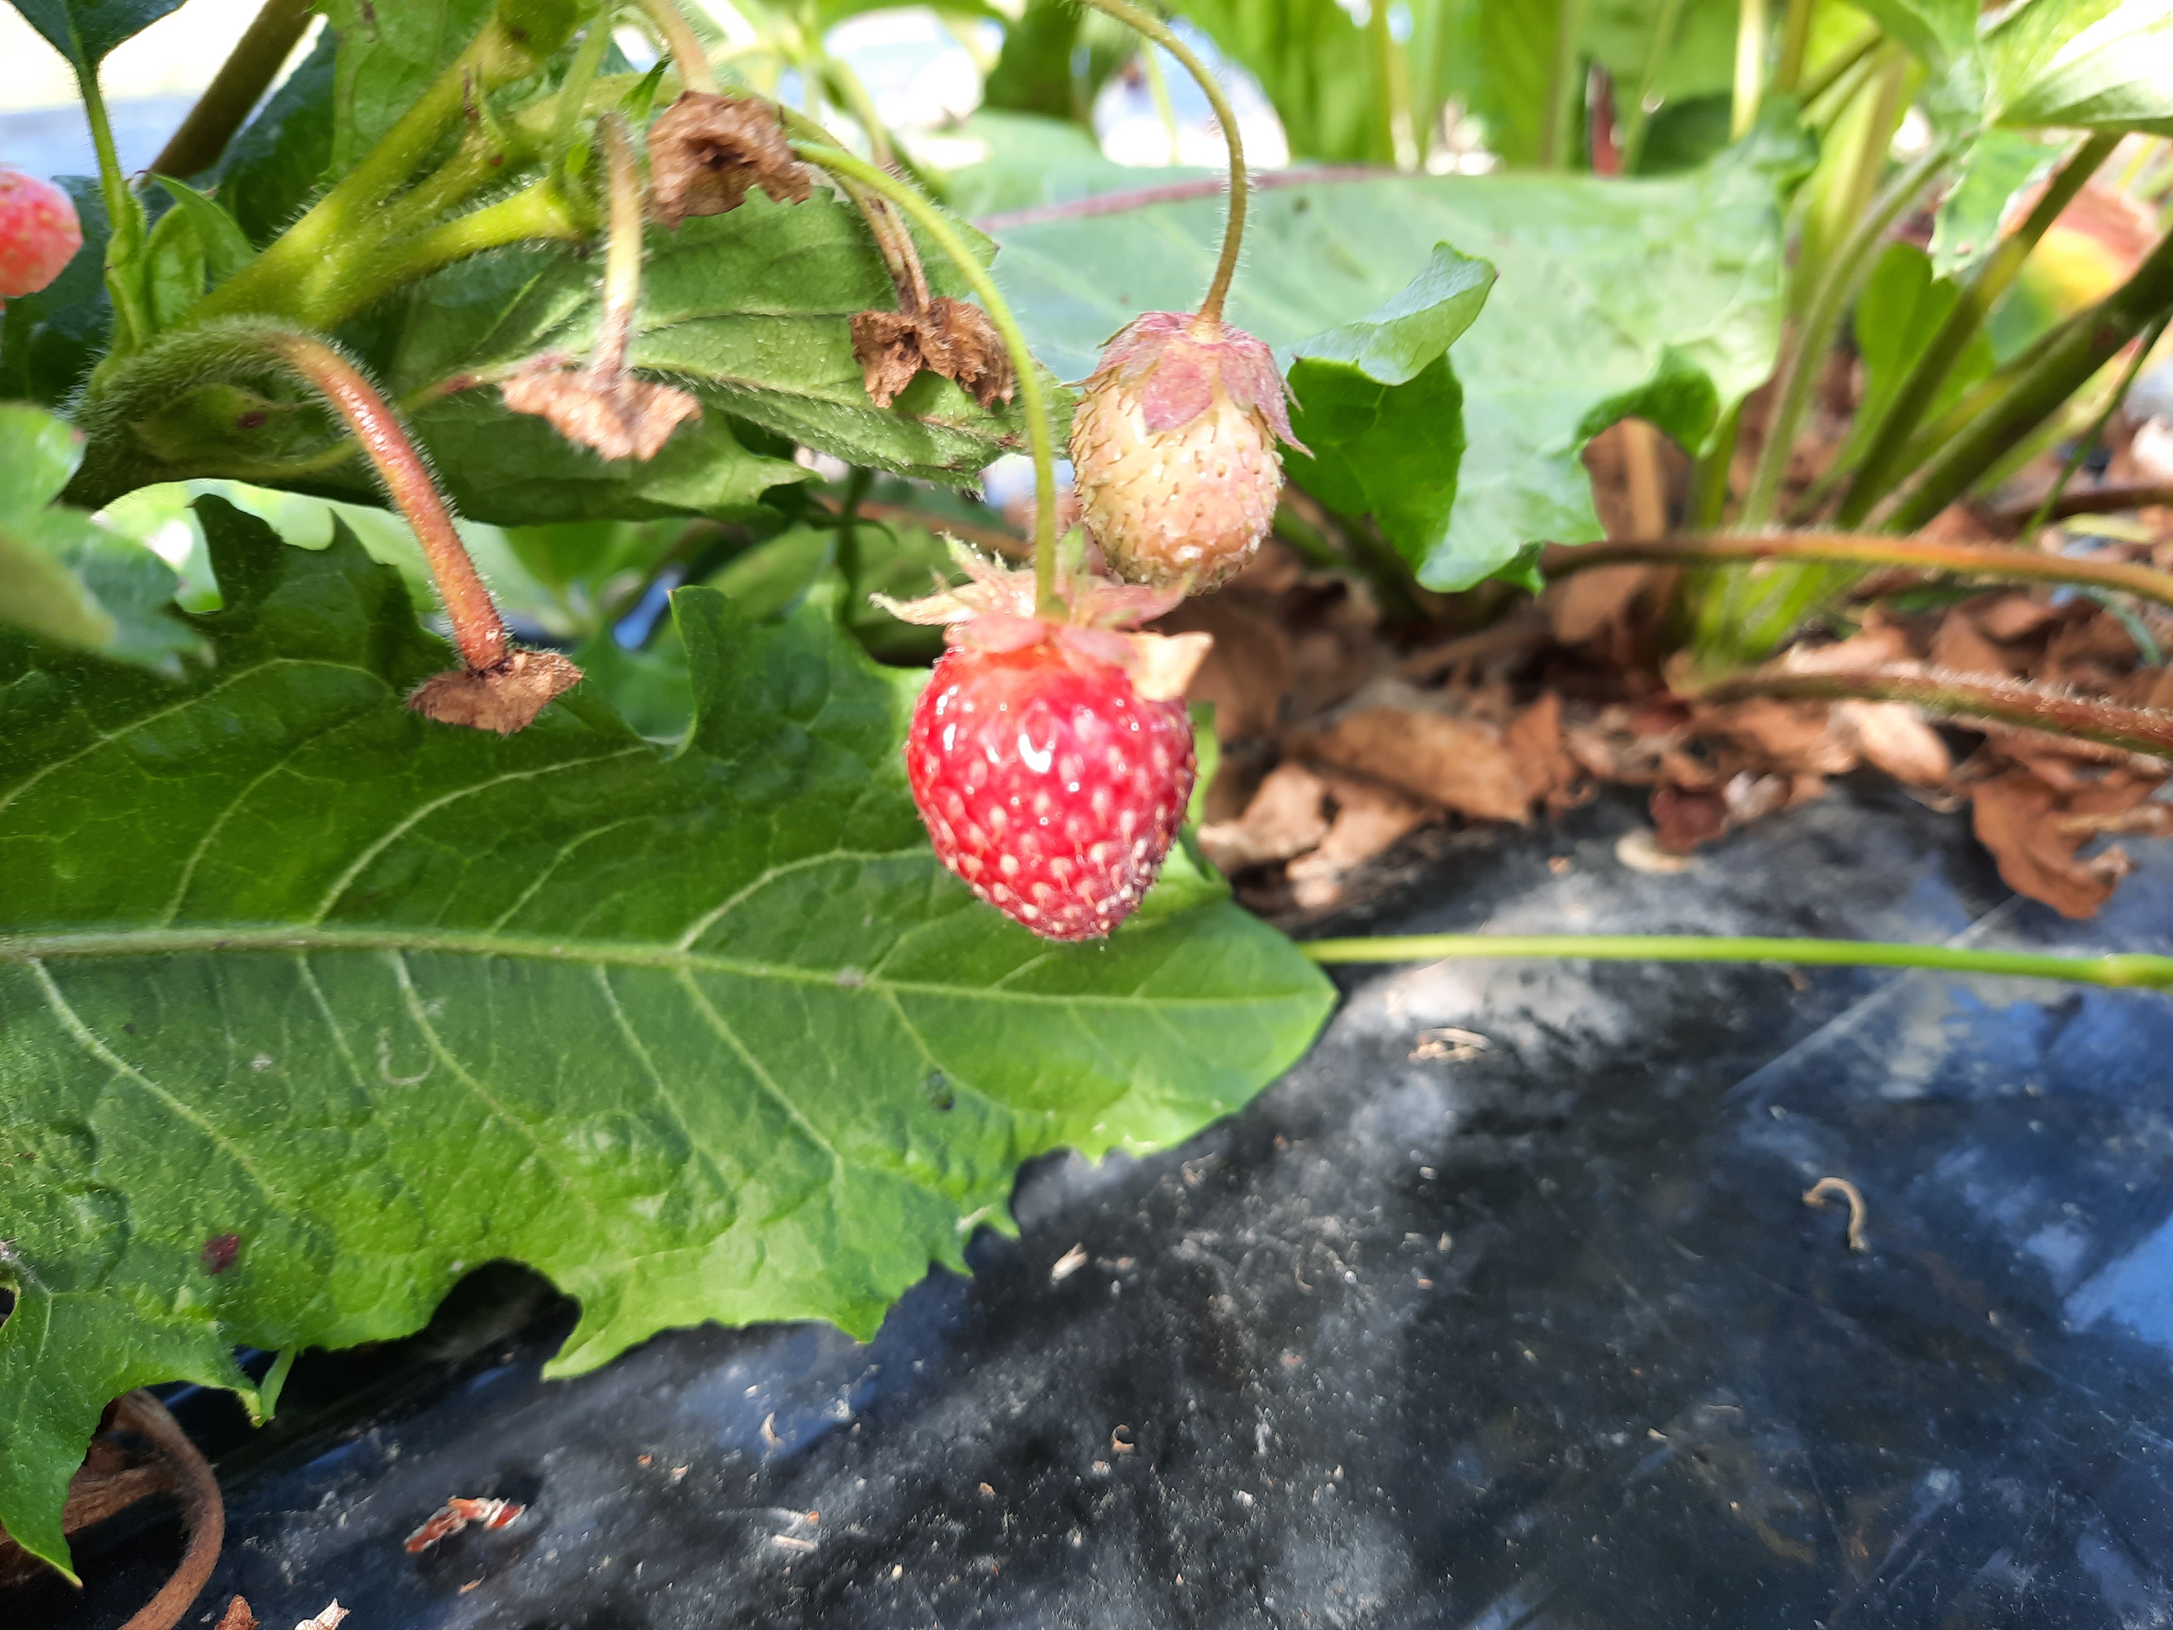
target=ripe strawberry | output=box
[916,633,1193,931]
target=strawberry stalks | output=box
[980,242,1070,679]
[1115,0,1251,382]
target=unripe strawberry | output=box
[1062,306,1297,595]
